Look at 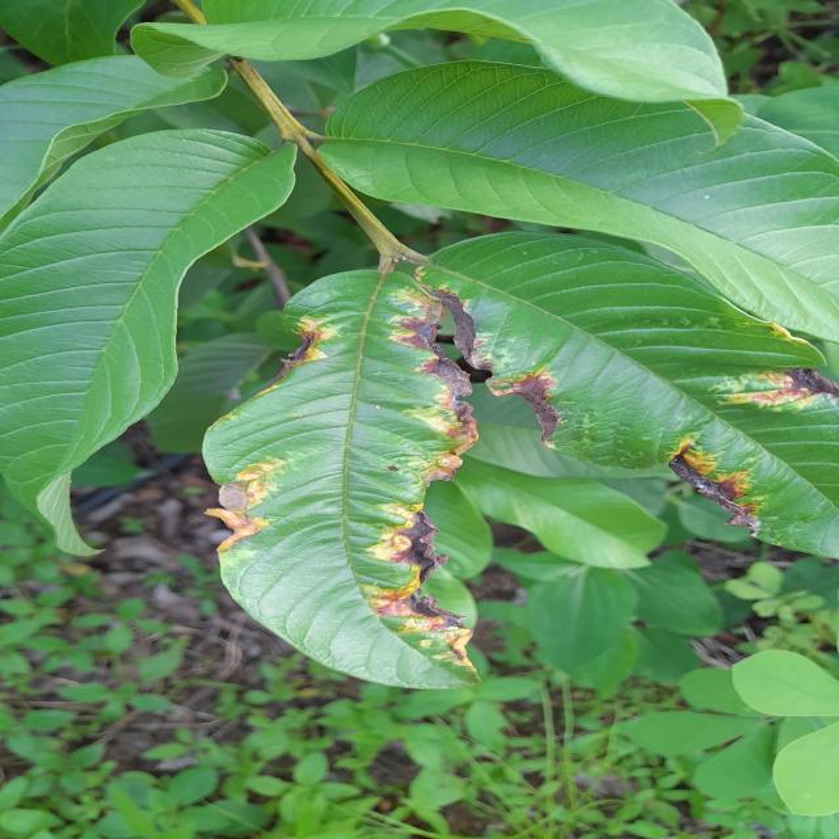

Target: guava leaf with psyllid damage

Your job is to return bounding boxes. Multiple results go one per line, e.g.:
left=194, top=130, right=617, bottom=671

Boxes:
left=191, top=271, right=525, bottom=723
